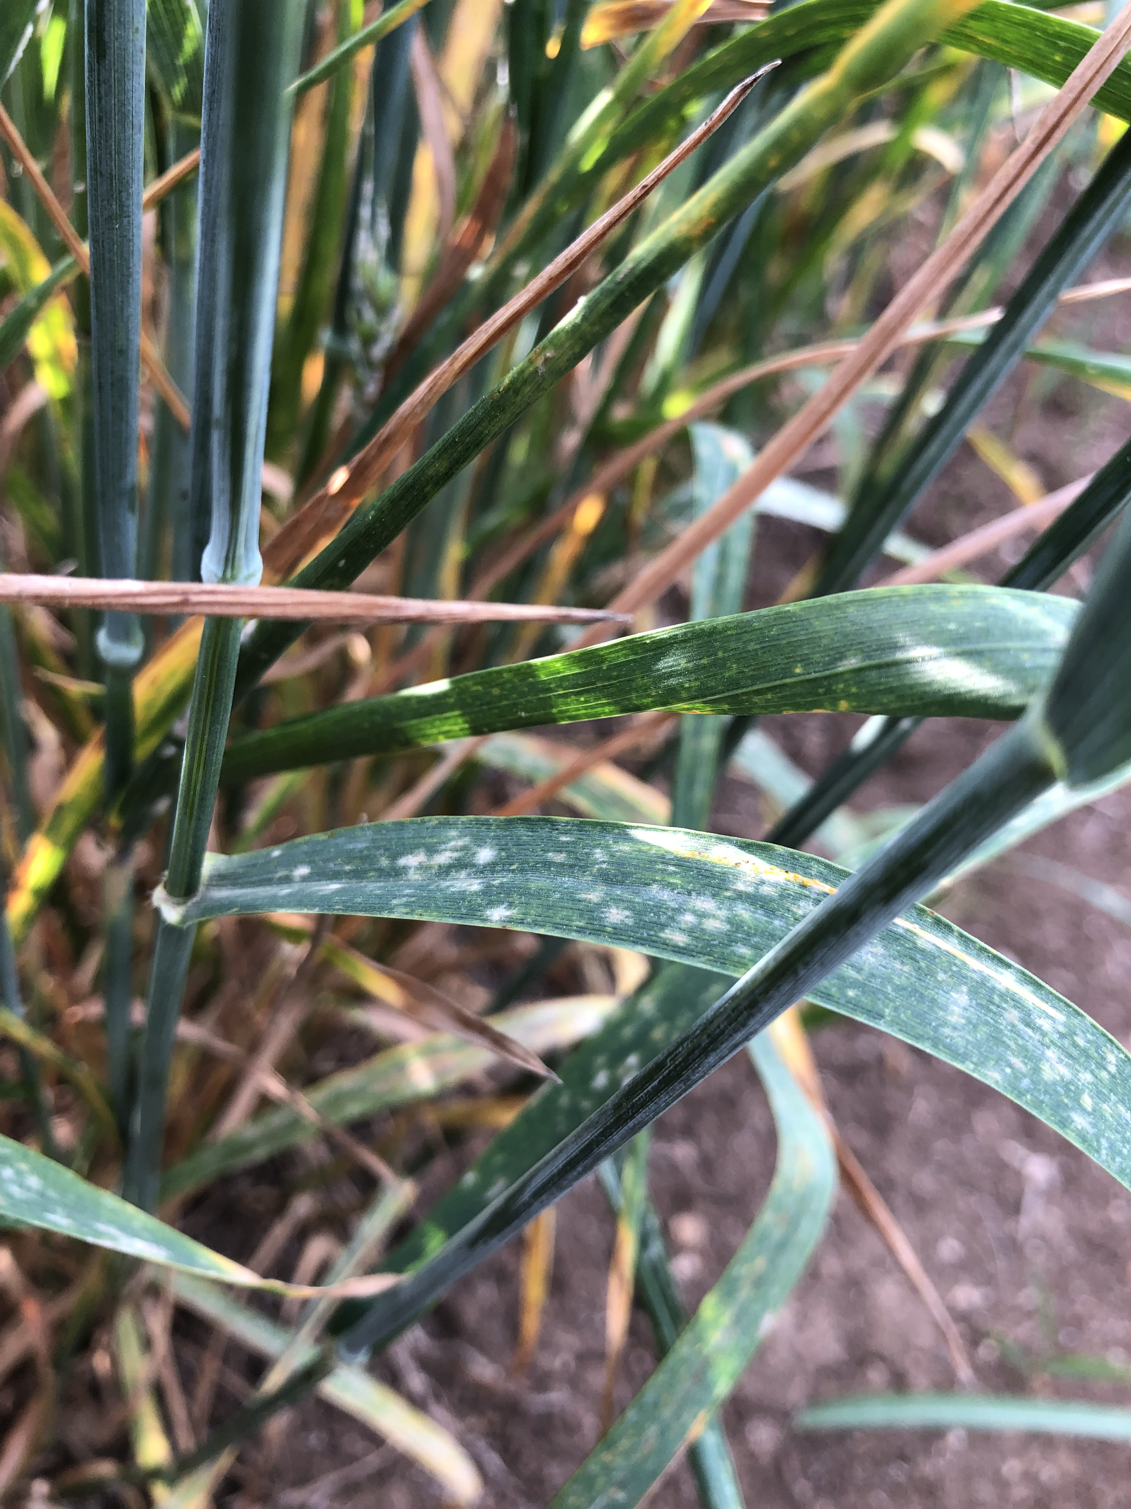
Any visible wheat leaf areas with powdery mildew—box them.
[519,331,582,398]
[247,791,839,1007]
[823,884,1131,1215]
[2,1128,249,1304]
